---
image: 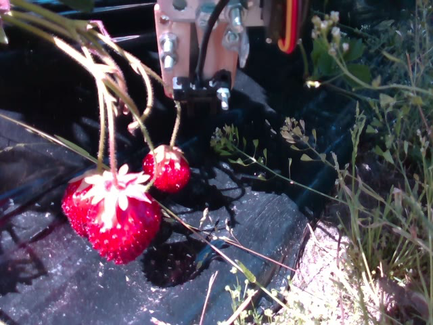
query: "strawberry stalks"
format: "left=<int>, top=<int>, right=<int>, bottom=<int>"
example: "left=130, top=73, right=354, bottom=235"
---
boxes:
left=106, top=104, right=124, bottom=217
left=86, top=104, right=106, bottom=194
left=160, top=102, right=184, bottom=163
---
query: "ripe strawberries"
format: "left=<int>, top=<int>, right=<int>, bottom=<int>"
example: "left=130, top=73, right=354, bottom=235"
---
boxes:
left=83, top=193, right=167, bottom=265
left=145, top=146, right=191, bottom=186
left=57, top=178, right=112, bottom=231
